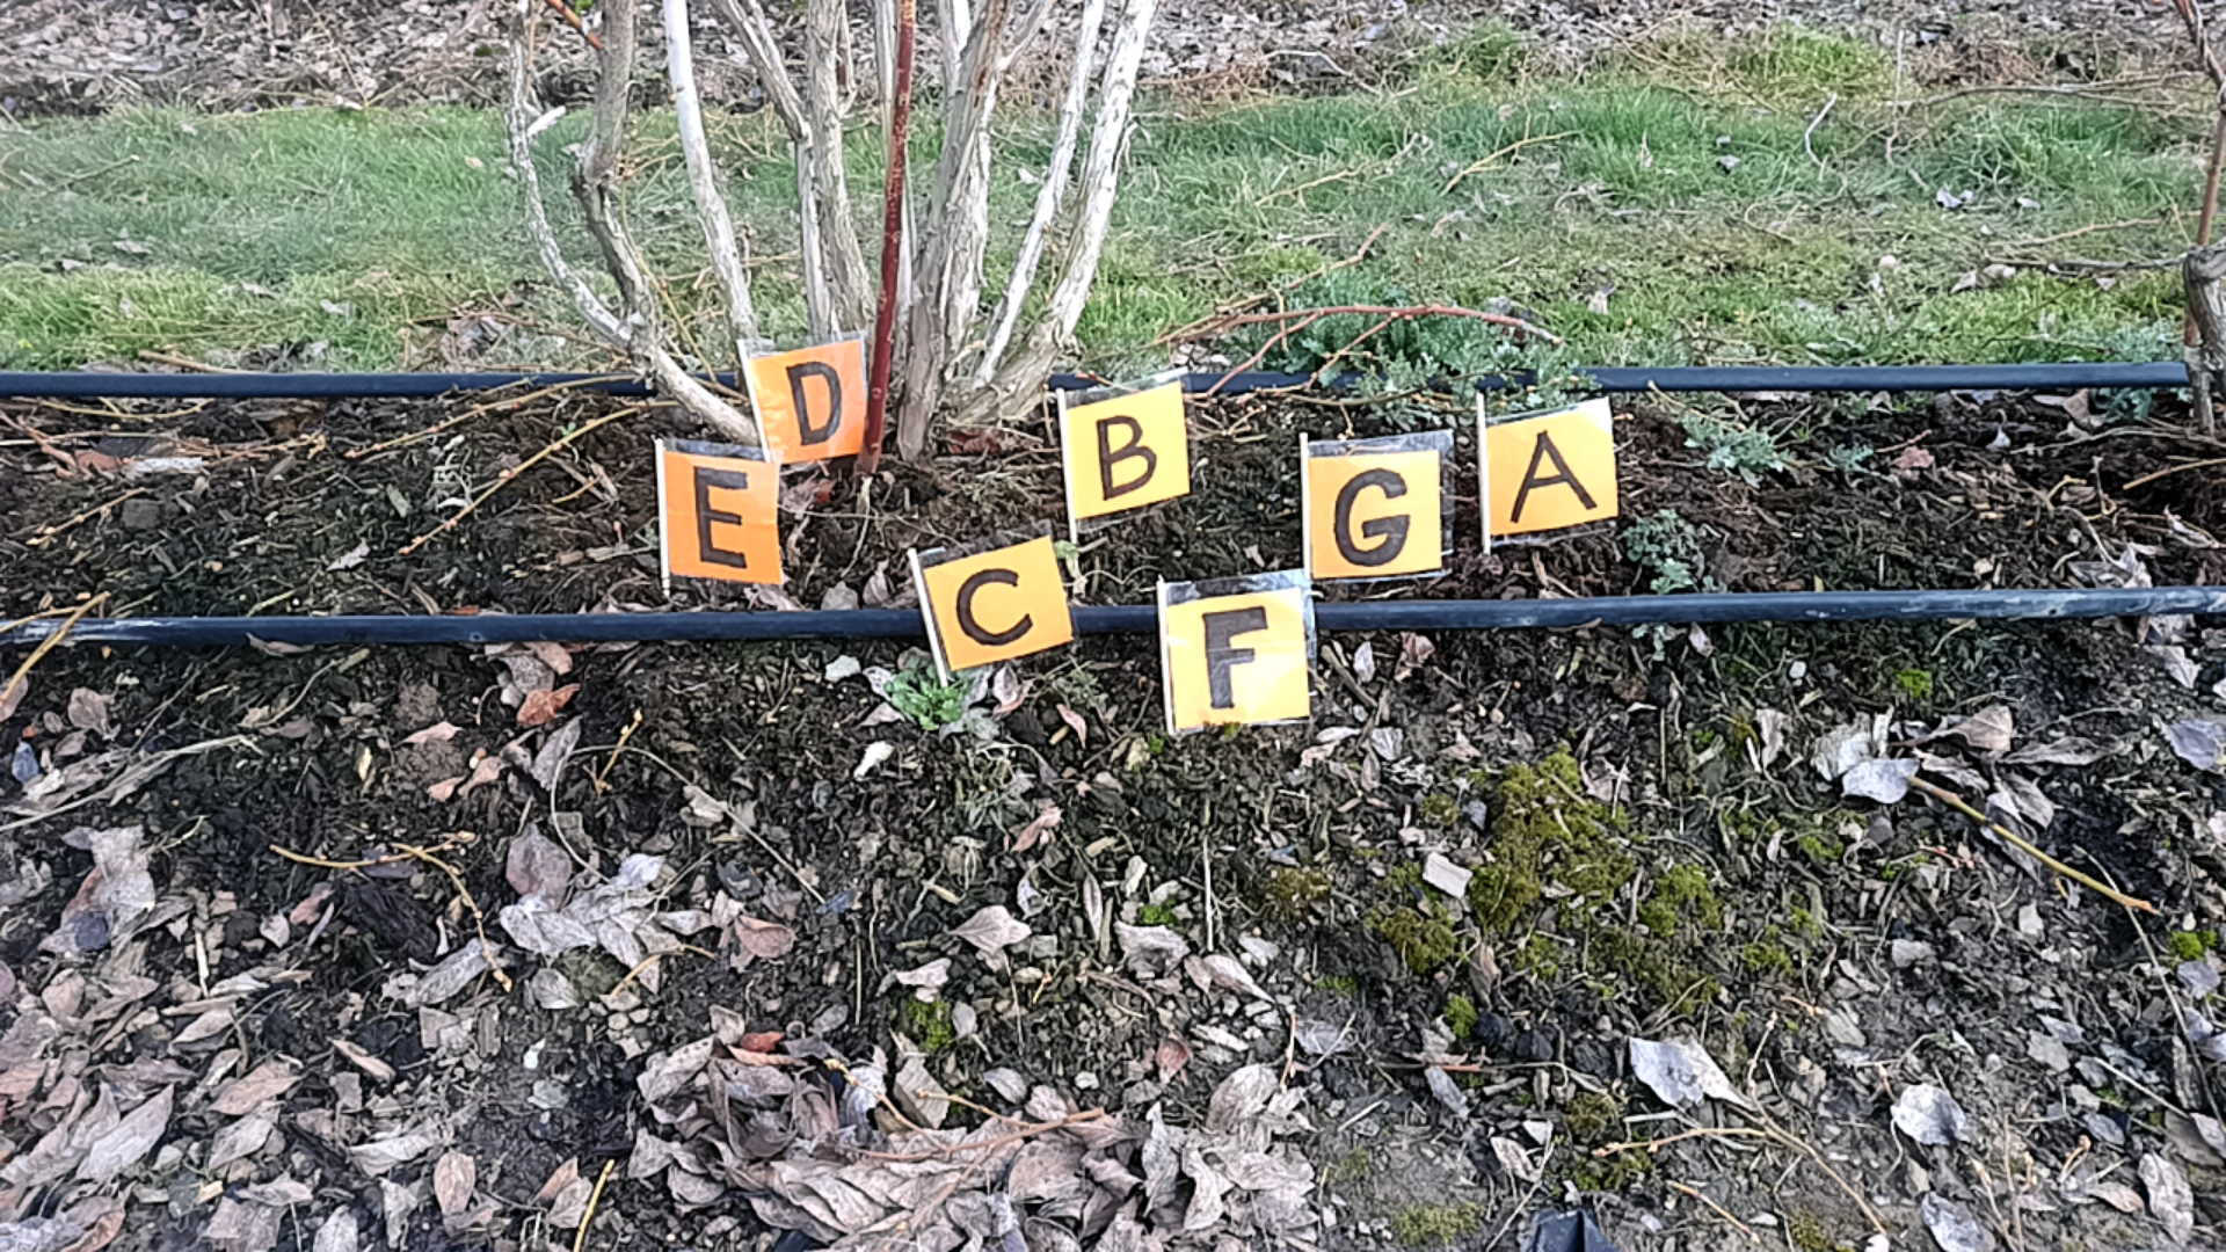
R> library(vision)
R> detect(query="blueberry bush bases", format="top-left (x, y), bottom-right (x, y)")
top-left (2134, 226), bottom-right (2226, 507)
top-left (533, 129), bottom-right (1106, 583)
